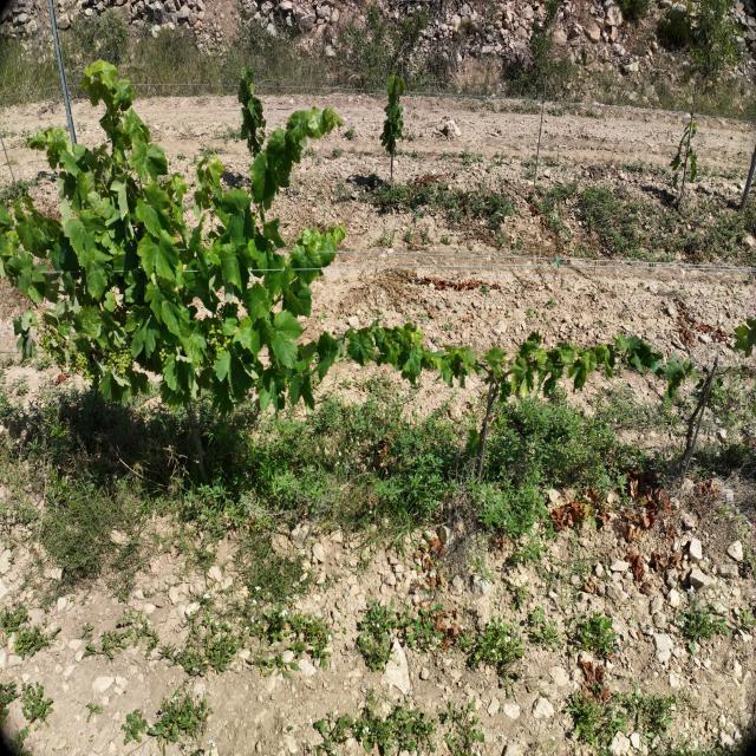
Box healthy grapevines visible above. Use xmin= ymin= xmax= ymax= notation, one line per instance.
xmin=0 ymin=60 xmax=345 ymax=504
xmin=344 ymin=312 xmax=620 ymax=502
xmin=618 ymin=308 xmax=756 ymax=504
